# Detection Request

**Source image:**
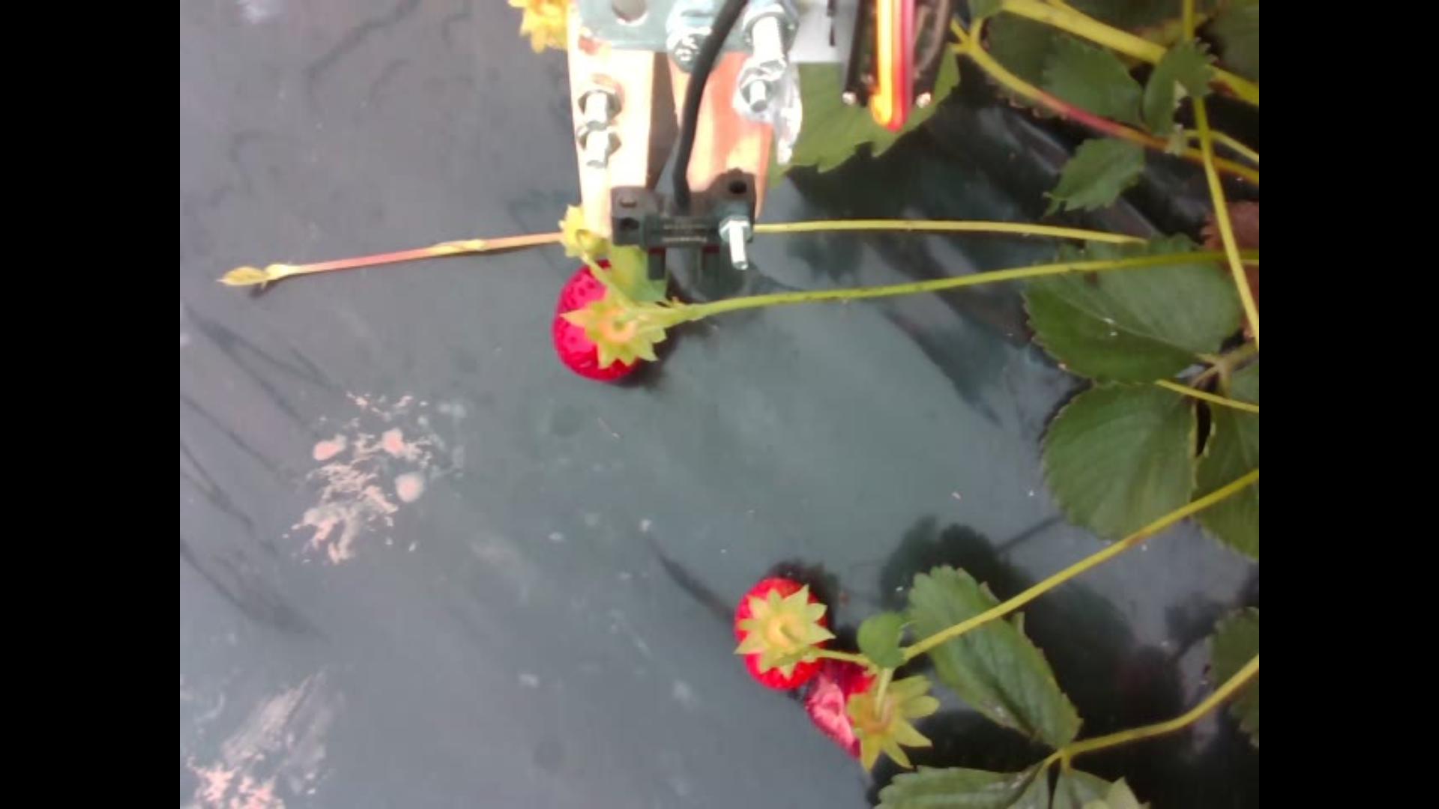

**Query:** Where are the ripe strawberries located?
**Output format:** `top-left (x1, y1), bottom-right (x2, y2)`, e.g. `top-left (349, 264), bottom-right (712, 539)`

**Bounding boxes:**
top-left (804, 649), bottom-right (926, 770)
top-left (543, 255), bottom-right (669, 388)
top-left (719, 573), bottom-right (833, 690)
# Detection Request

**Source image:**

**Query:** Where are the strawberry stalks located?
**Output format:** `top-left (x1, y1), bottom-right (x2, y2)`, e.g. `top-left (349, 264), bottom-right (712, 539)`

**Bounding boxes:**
top-left (869, 656), bottom-right (906, 735)
top-left (602, 287), bottom-right (791, 334)
top-left (785, 630), bottom-right (880, 681)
